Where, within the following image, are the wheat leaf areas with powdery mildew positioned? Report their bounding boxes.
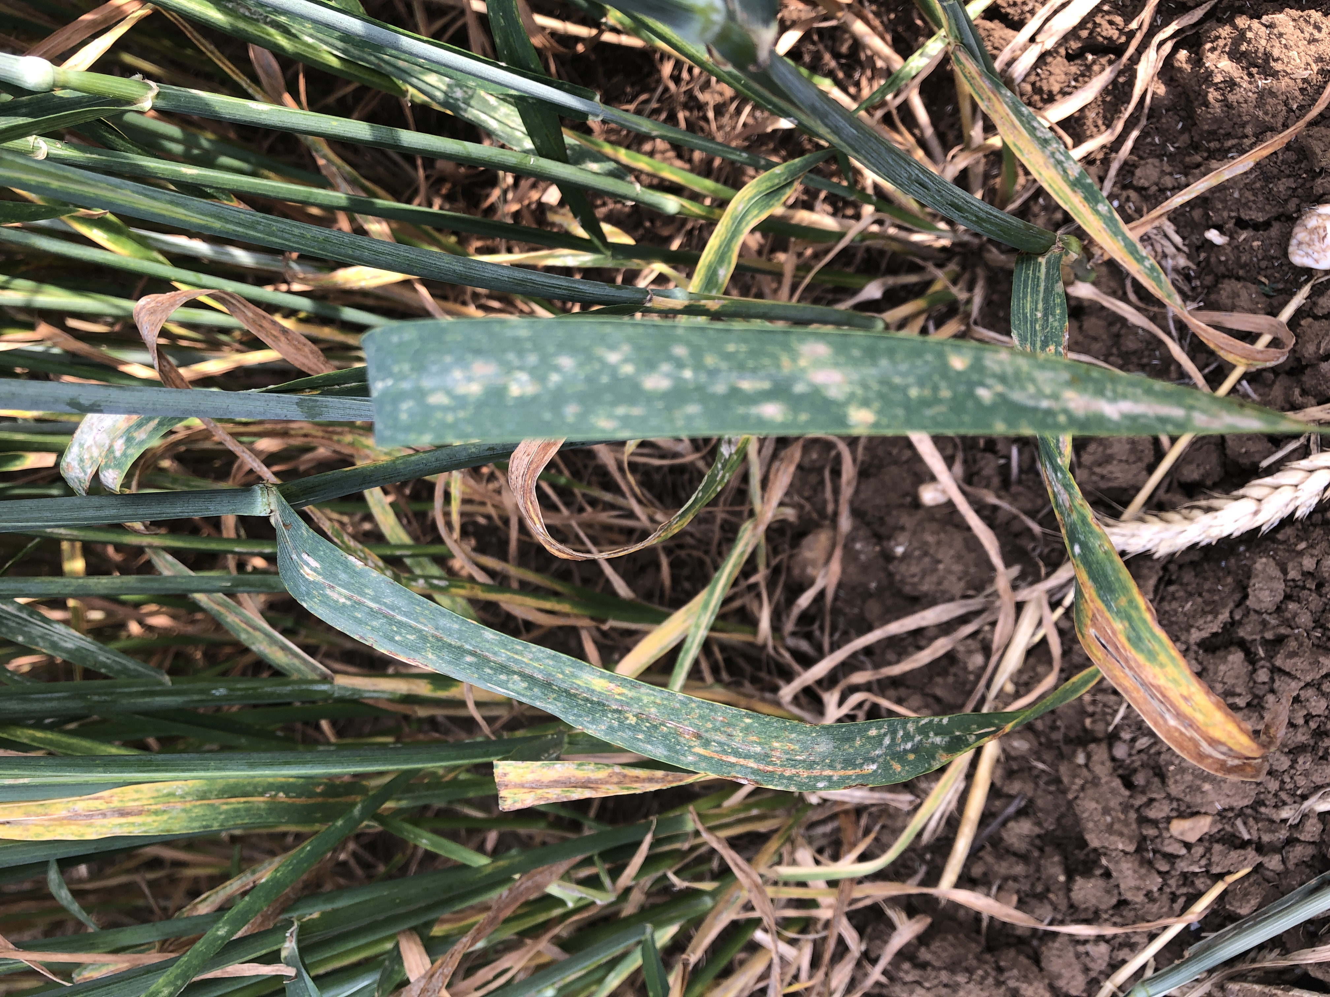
[296,4,525,153]
[270,523,979,803]
[373,308,1228,459]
